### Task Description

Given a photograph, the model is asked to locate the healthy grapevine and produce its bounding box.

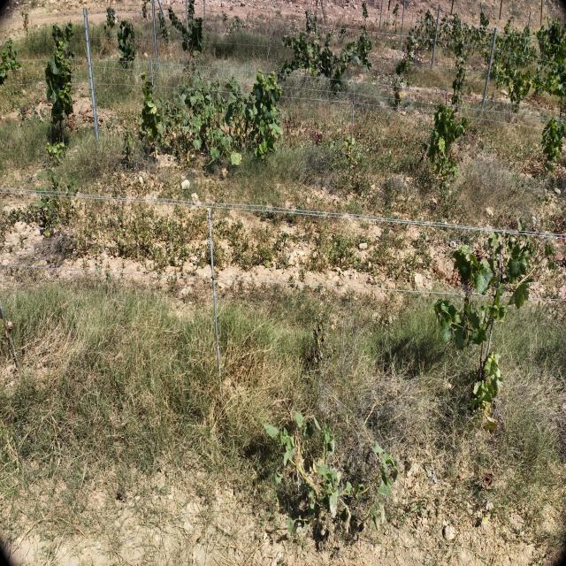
[431,222,559,429]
